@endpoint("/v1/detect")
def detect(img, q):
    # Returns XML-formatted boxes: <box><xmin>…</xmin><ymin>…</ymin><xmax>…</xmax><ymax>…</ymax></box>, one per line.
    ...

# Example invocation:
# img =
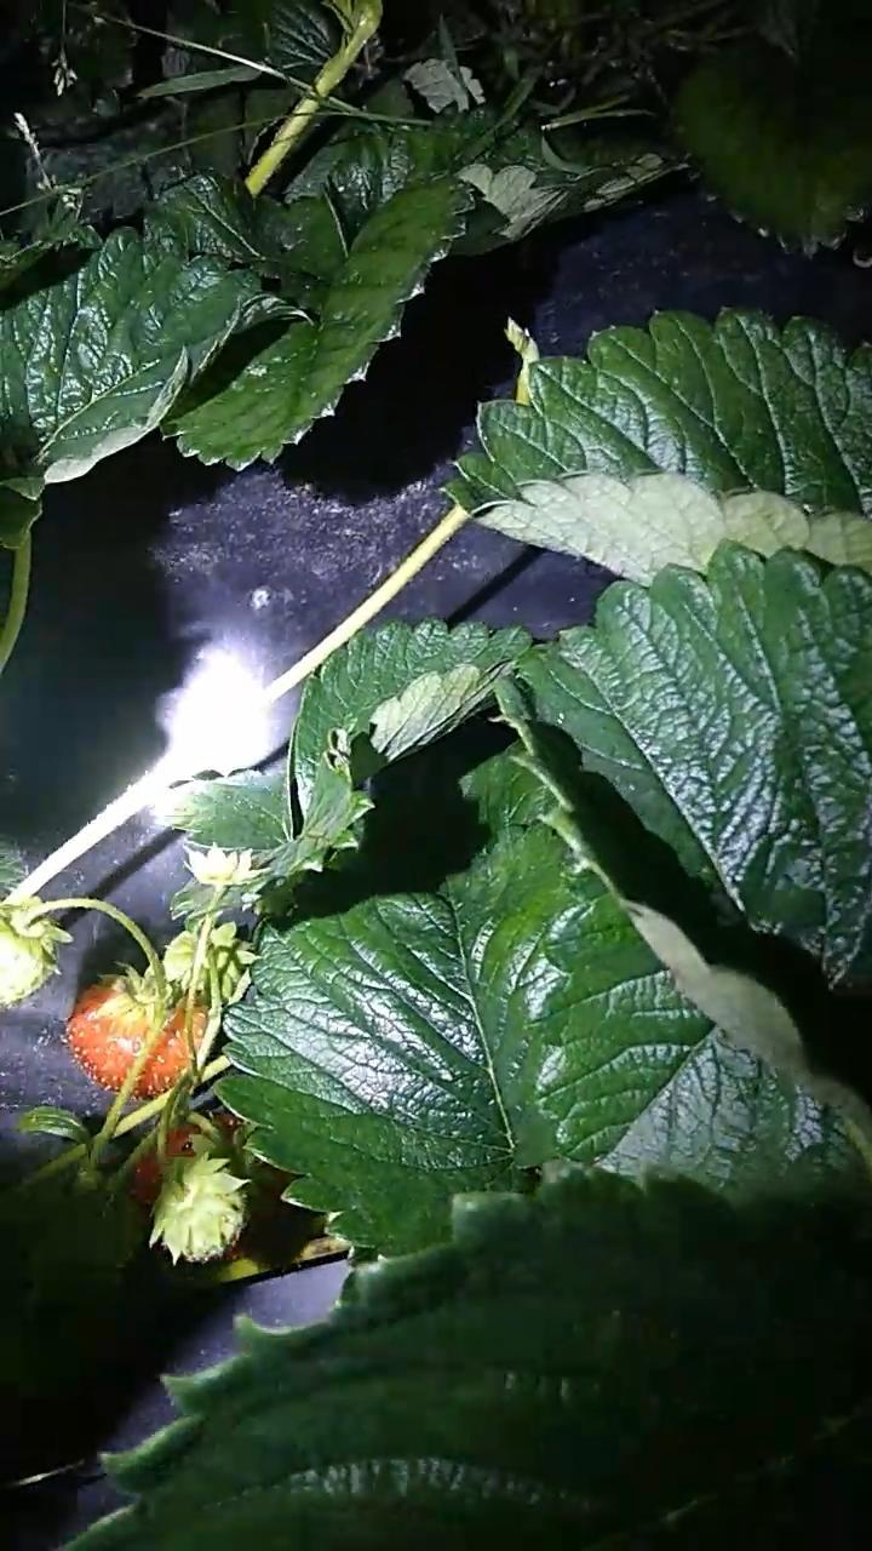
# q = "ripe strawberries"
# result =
<box><xmin>127</xmin><ymin>1106</ymin><xmax>285</xmax><ymax>1272</ymax></box>
<box><xmin>70</xmin><ymin>974</ymin><xmax>205</xmax><ymax>1097</ymax></box>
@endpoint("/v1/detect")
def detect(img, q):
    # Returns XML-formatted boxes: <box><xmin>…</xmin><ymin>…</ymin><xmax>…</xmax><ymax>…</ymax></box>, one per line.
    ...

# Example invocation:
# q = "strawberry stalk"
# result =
<box><xmin>85</xmin><ymin>902</ymin><xmax>177</xmax><ymax>1028</ymax></box>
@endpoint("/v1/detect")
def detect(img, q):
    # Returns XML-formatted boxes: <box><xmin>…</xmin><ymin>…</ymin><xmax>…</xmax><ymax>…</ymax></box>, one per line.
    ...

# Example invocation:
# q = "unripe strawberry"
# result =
<box><xmin>0</xmin><ymin>897</ymin><xmax>67</xmax><ymax>1015</ymax></box>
